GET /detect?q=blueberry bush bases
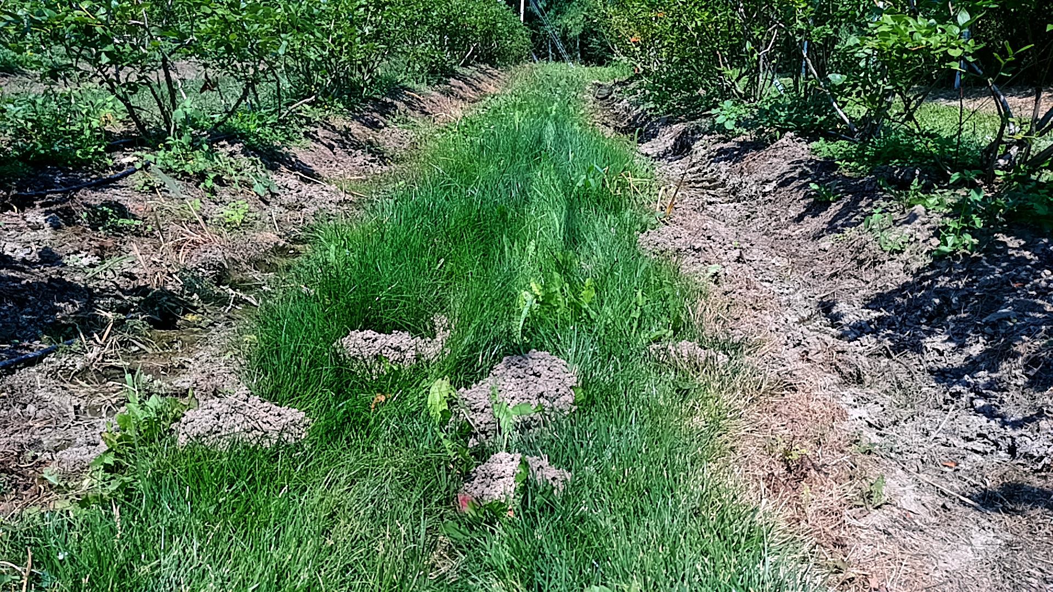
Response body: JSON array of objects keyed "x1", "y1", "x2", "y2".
[
  {"x1": 787, "y1": 56, "x2": 920, "y2": 173},
  {"x1": 84, "y1": 60, "x2": 251, "y2": 168},
  {"x1": 686, "y1": 39, "x2": 773, "y2": 143},
  {"x1": 942, "y1": 65, "x2": 1051, "y2": 204}
]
